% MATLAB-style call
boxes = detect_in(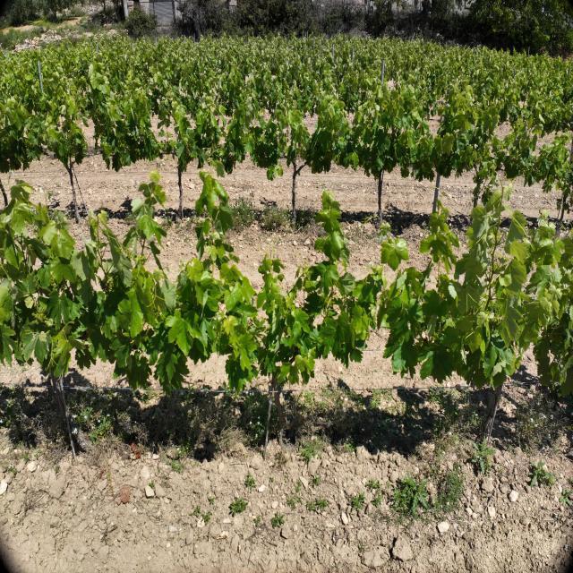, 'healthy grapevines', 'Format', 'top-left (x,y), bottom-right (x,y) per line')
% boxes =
(381, 206), (573, 447)
(0, 184), (175, 466)
(170, 206), (386, 465)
